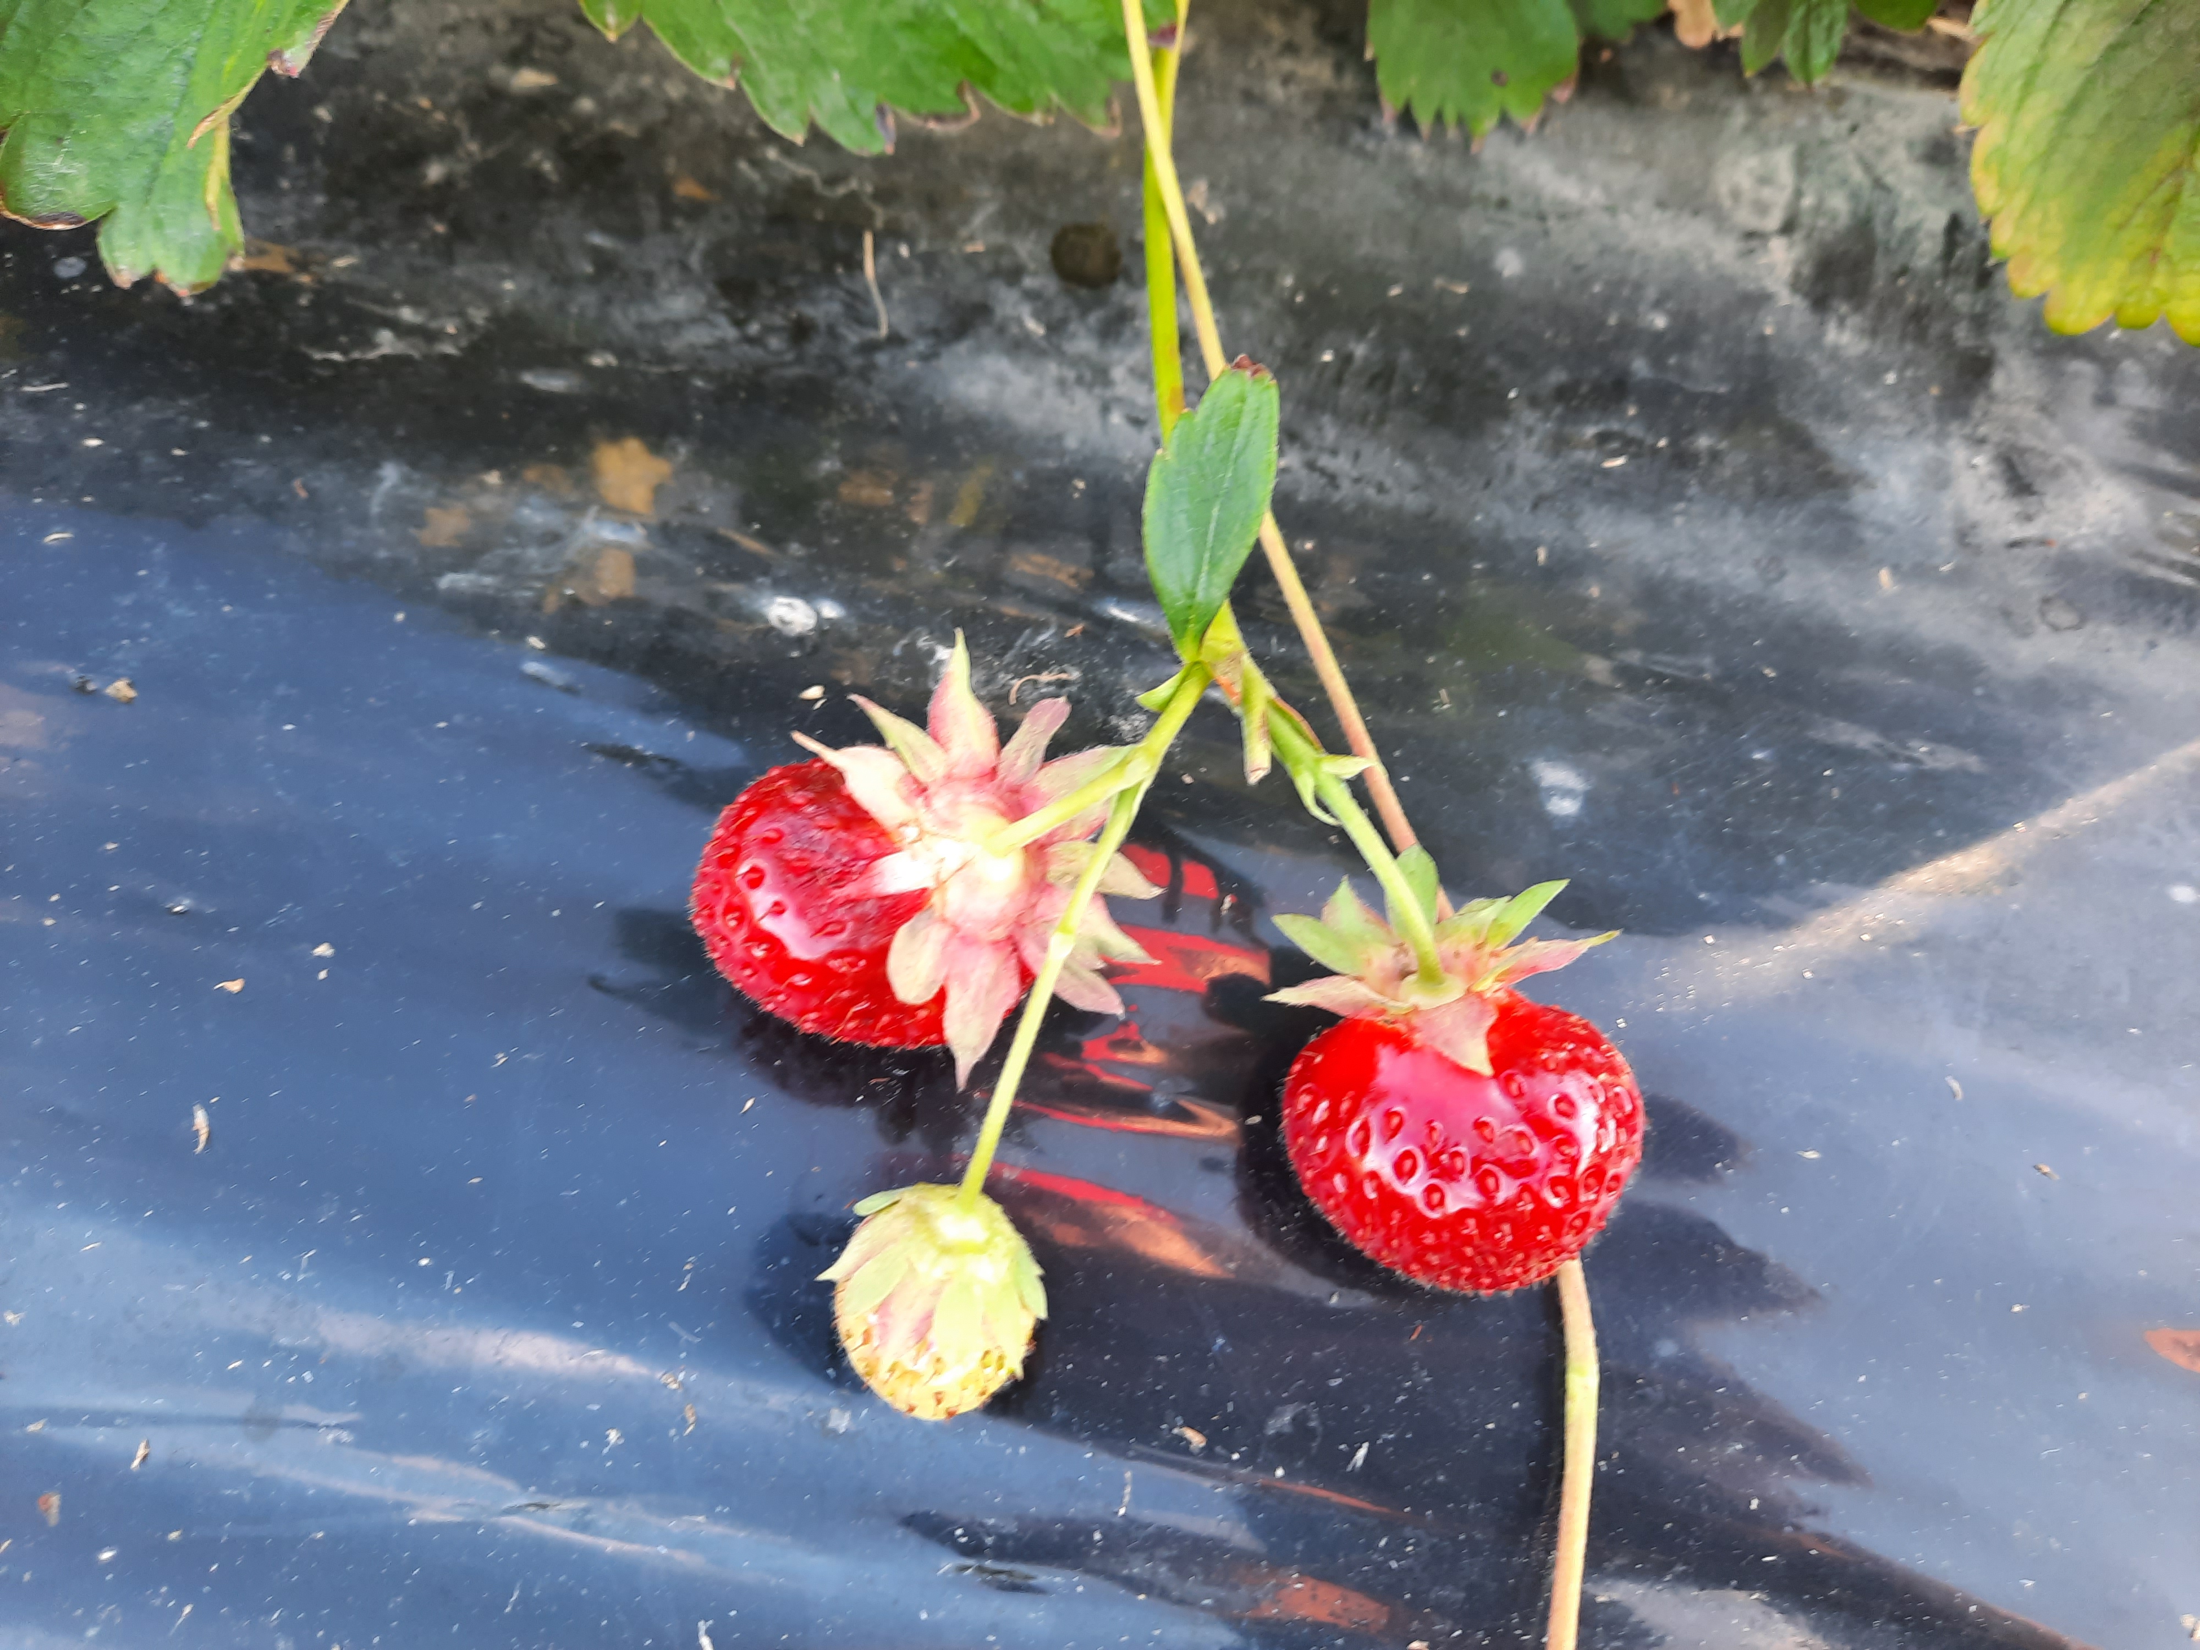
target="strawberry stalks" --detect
[903,720,1157,855]
[1246,695,1436,1054]
[936,888,1104,1232]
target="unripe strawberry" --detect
[841,1206,1027,1419]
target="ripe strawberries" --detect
[699,716,1043,1060]
[1286,999,1647,1293]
